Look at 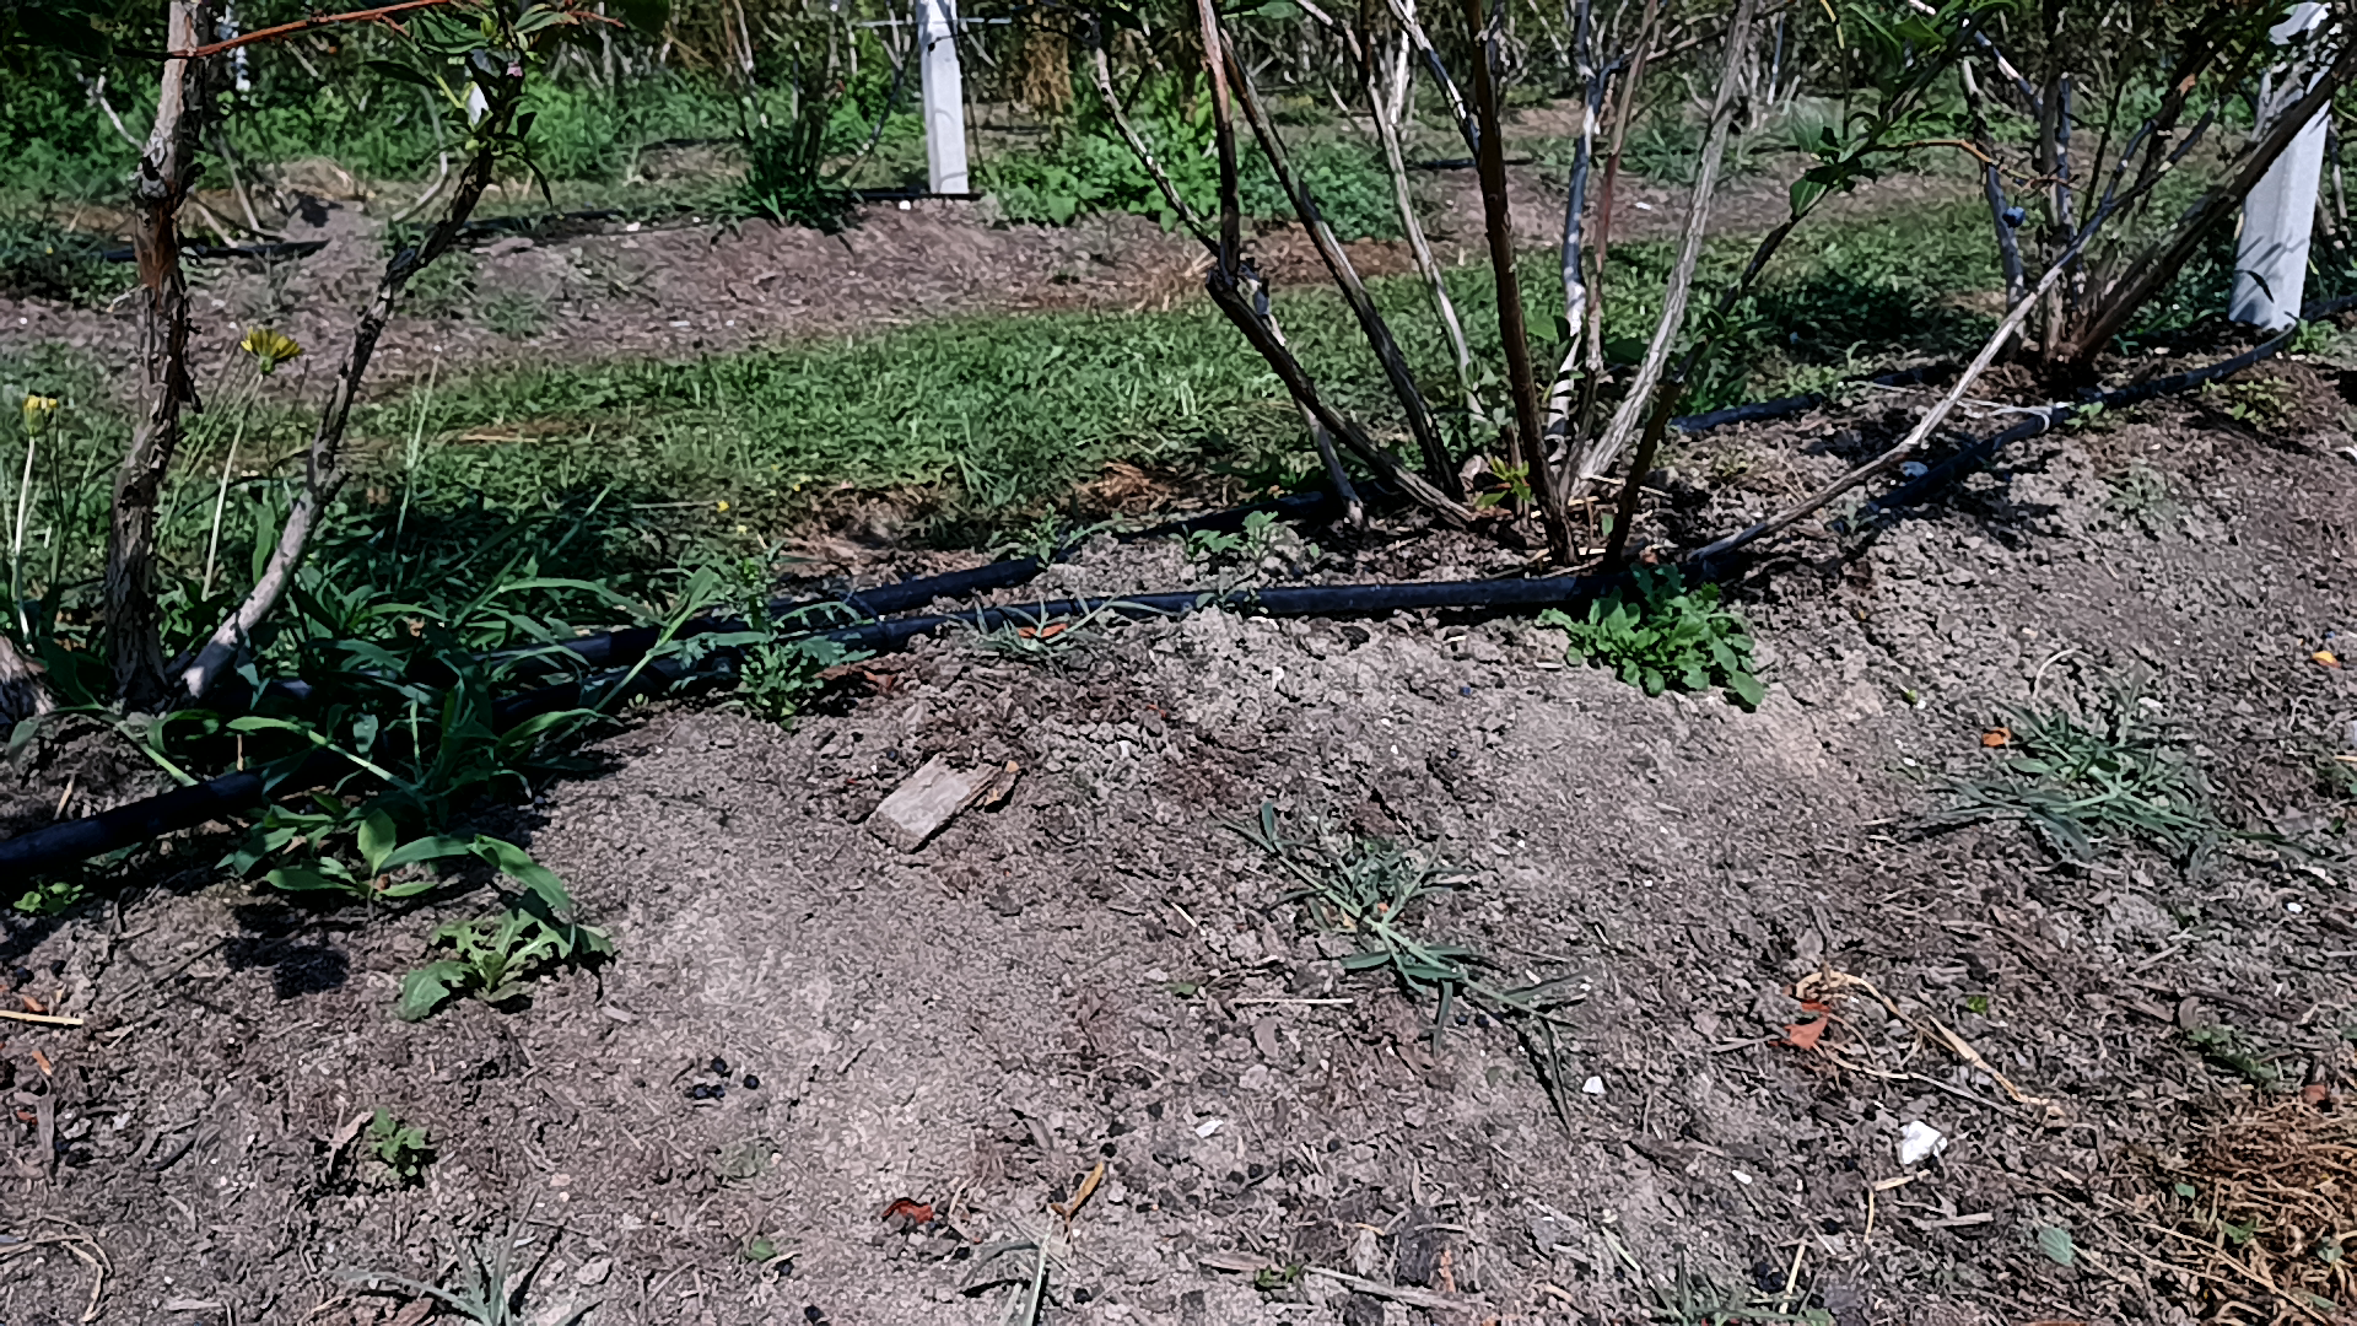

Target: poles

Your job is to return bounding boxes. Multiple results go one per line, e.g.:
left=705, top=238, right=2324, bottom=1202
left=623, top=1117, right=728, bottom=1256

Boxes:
left=2220, top=25, right=2346, bottom=360
left=906, top=11, right=970, bottom=195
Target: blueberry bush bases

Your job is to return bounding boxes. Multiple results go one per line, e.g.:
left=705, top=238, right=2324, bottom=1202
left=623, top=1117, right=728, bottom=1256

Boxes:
left=1954, top=184, right=2220, bottom=444
left=1251, top=301, right=1762, bottom=638
left=217, top=162, right=414, bottom=263
left=0, top=478, right=382, bottom=875
left=714, top=113, right=853, bottom=230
